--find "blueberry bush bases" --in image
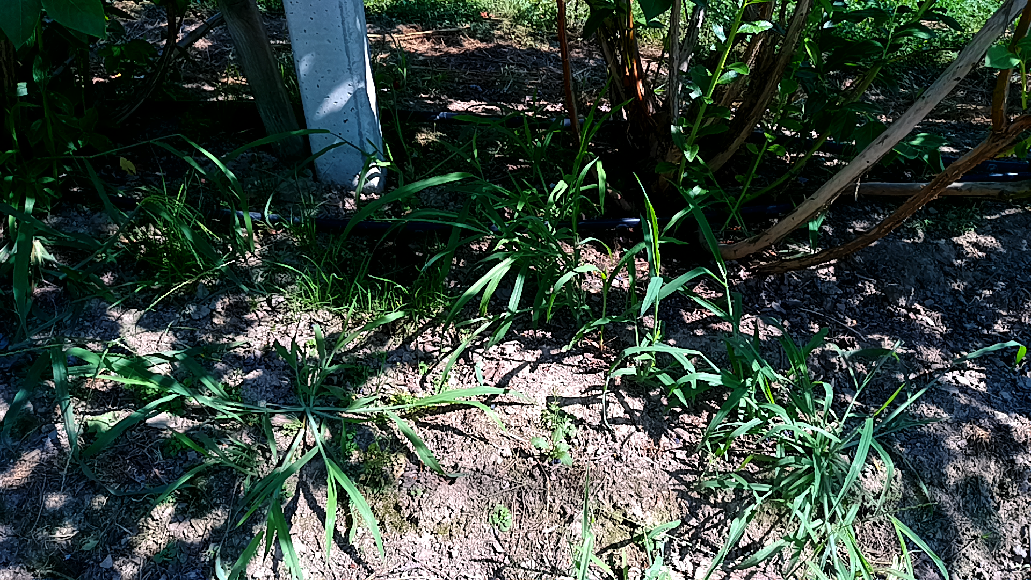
[2,7,190,217]
[552,35,907,304]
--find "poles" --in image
[216,3,296,165]
[282,1,389,200]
